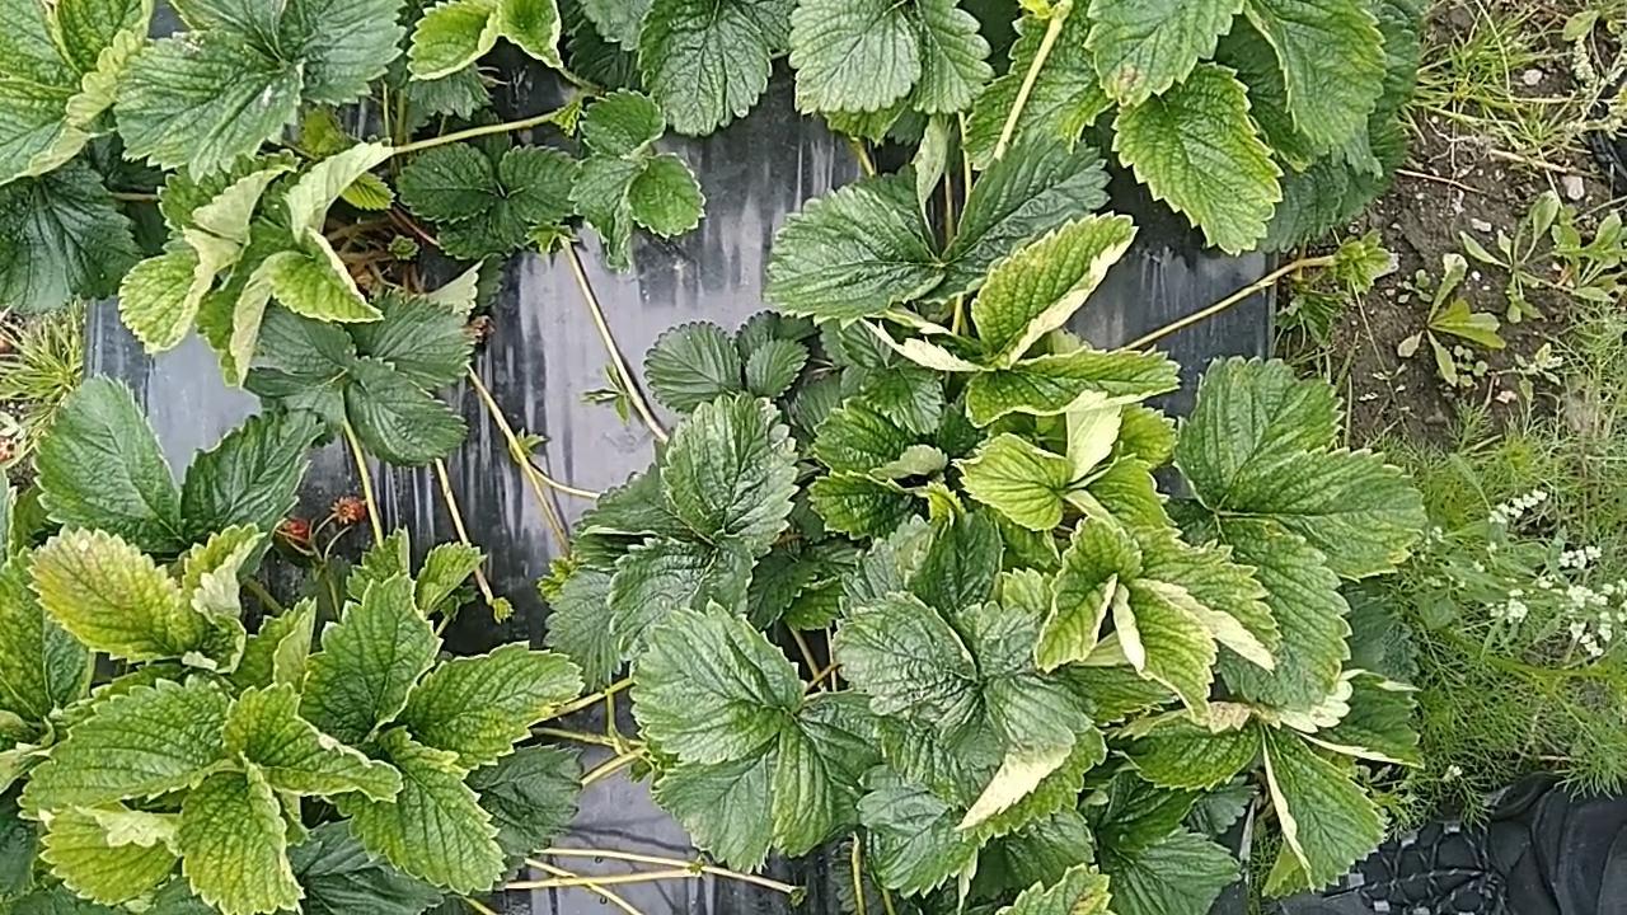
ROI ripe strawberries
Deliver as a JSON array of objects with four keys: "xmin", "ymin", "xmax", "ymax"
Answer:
[
  {"xmin": 276, "ymin": 515, "xmax": 311, "ymax": 551},
  {"xmin": 328, "ymin": 493, "xmax": 366, "ymax": 525}
]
